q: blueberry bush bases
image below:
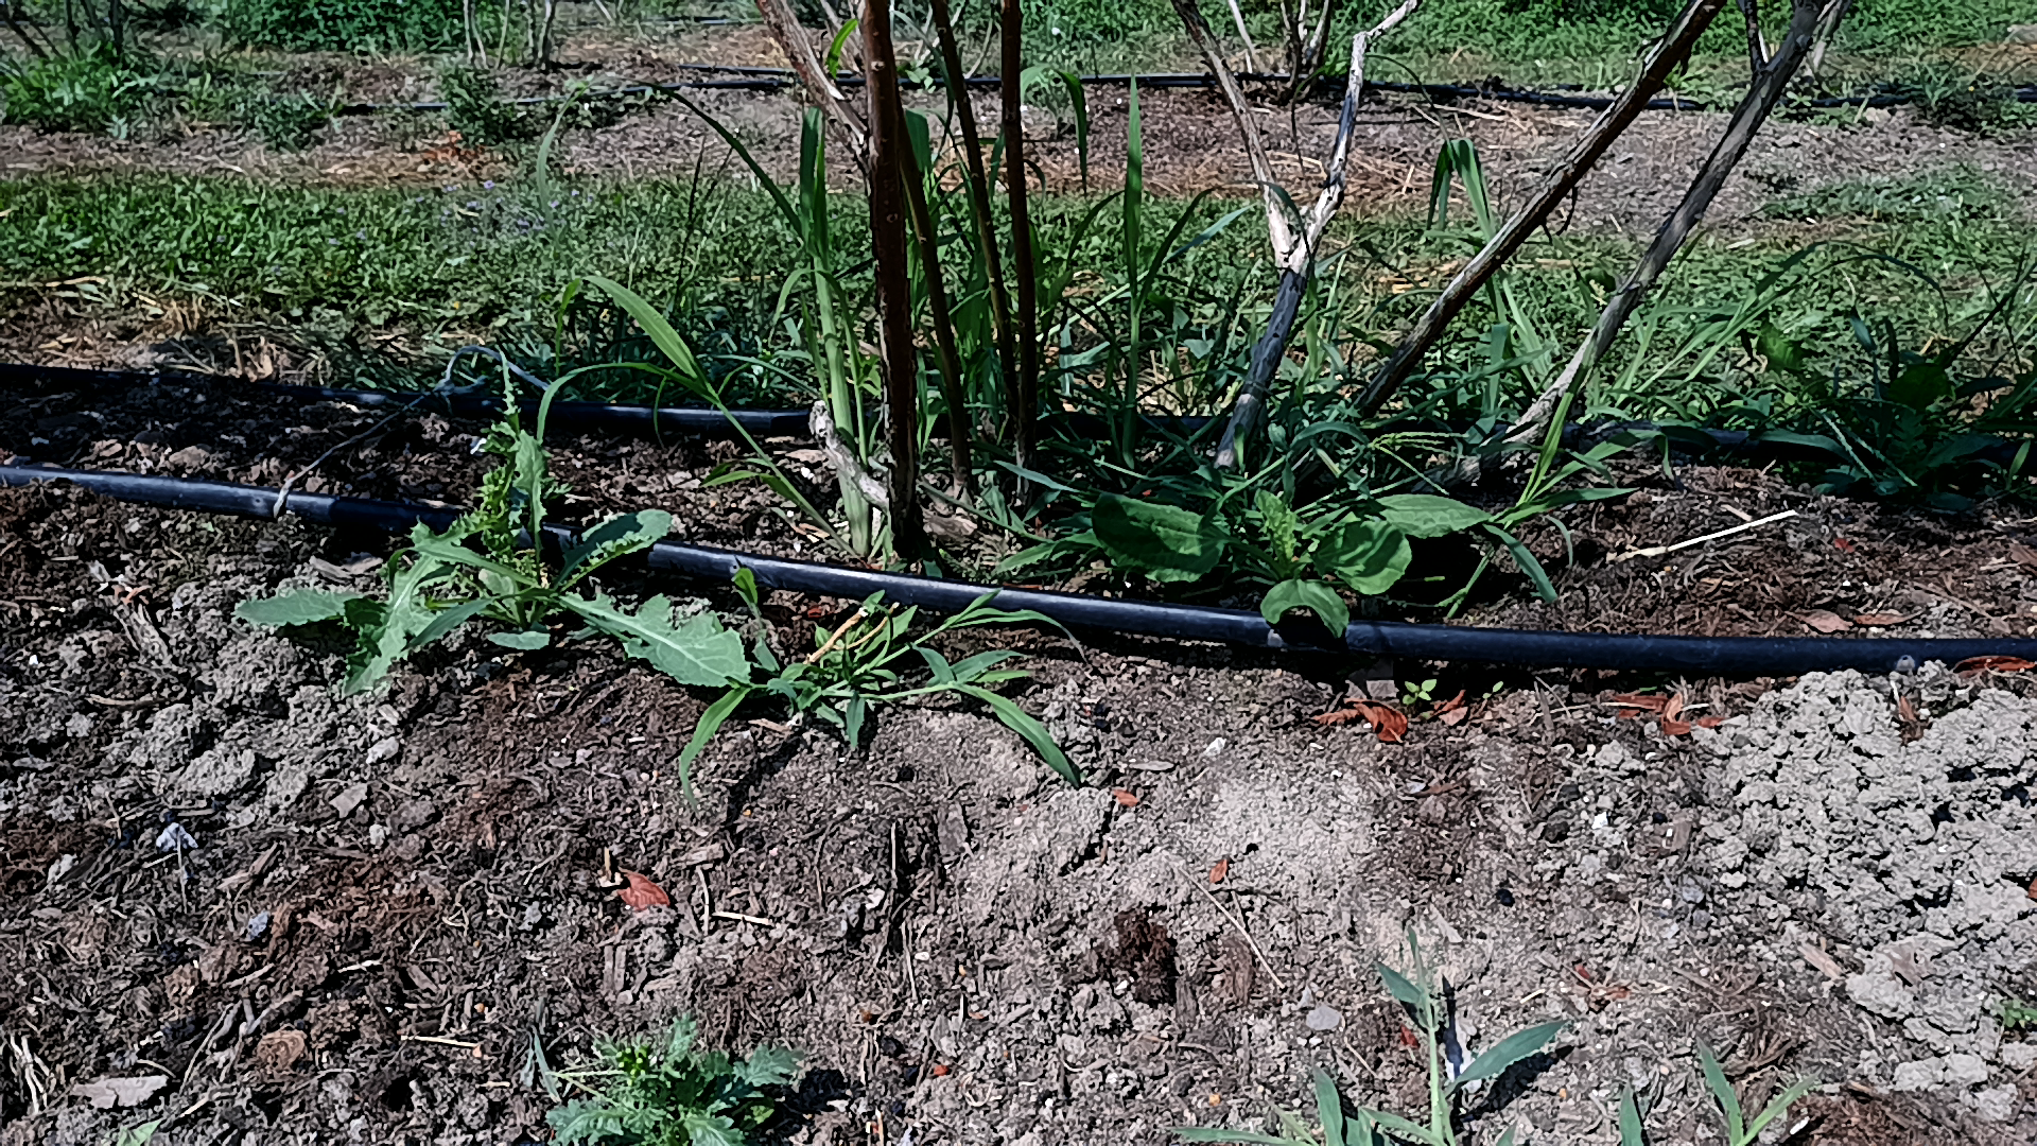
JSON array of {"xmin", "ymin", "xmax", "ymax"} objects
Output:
[
  {"xmin": 436, "ymin": 7, "xmax": 565, "ymax": 94},
  {"xmin": 1721, "ymin": 17, "xmax": 1869, "ymax": 110},
  {"xmin": 786, "ymin": 9, "xmax": 1001, "ymax": 114},
  {"xmin": 643, "ymin": 173, "xmax": 1668, "ymax": 704},
  {"xmin": 1228, "ymin": 25, "xmax": 1358, "ymax": 117},
  {"xmin": 0, "ymin": 0, "xmax": 143, "ymax": 92}
]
